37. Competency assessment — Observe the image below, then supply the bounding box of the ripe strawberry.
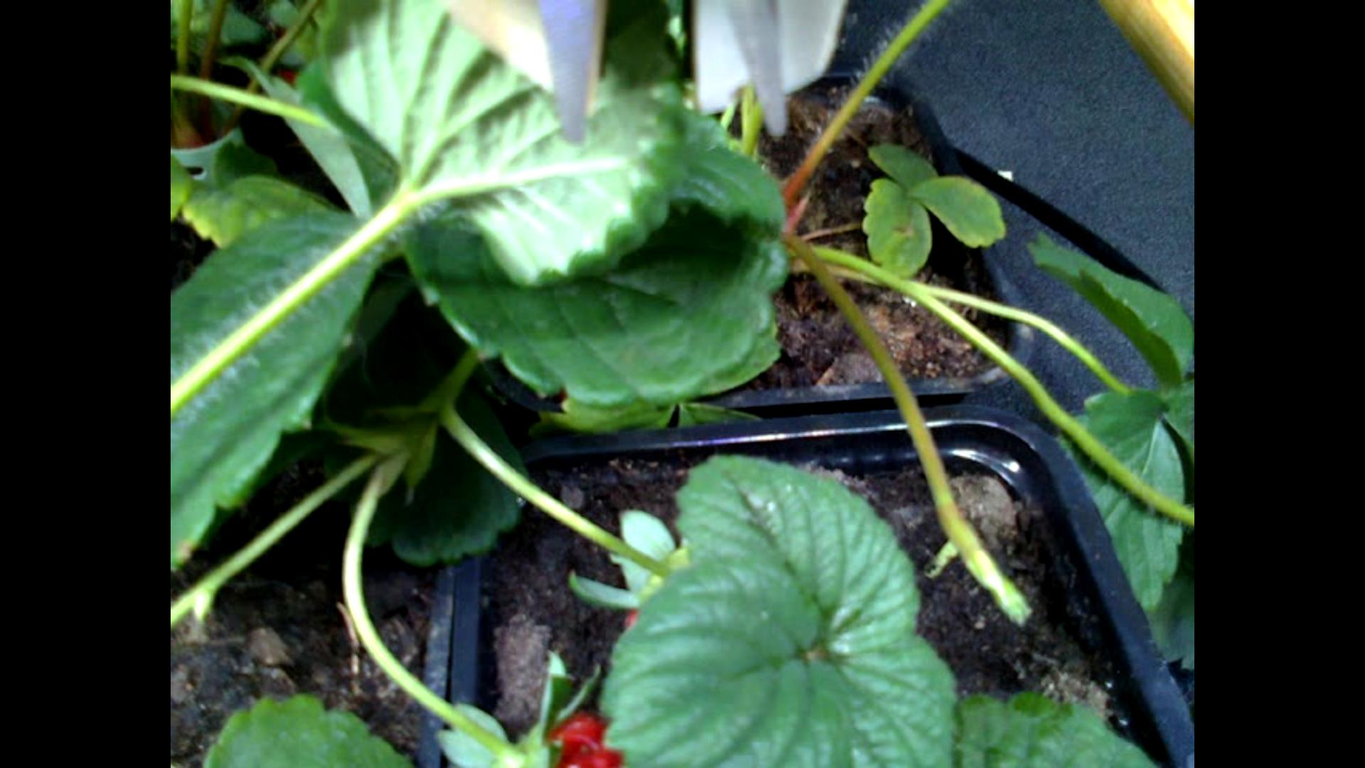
[528,682,676,768]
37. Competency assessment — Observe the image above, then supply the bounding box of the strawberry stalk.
[341,596,551,760]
